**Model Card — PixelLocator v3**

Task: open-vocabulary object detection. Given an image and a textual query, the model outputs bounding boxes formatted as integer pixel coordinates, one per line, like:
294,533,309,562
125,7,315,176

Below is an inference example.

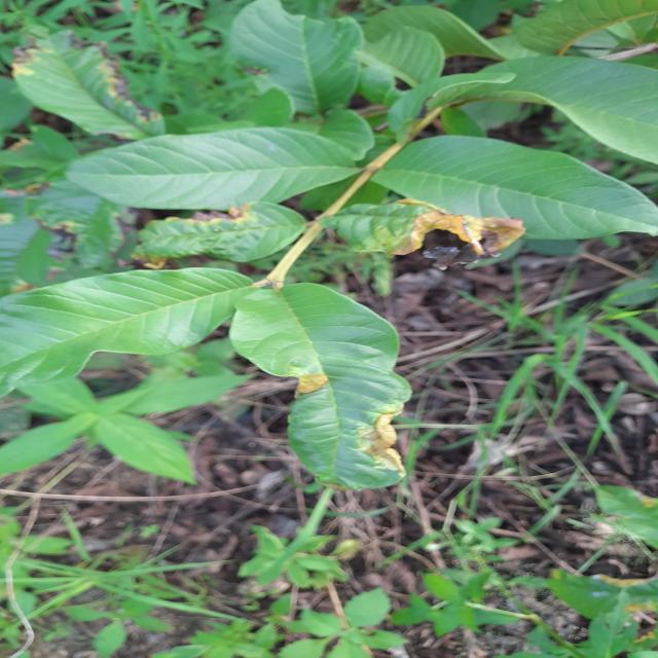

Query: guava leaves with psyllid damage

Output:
302,188,541,271
206,269,442,492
